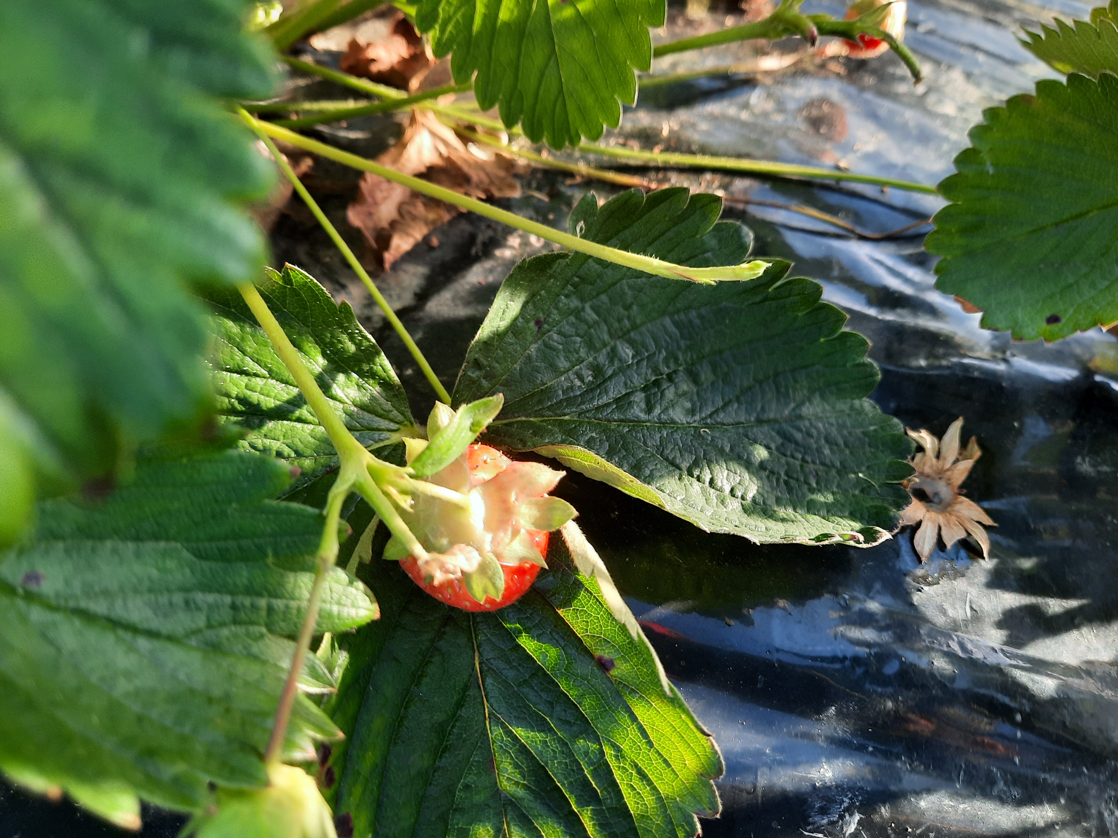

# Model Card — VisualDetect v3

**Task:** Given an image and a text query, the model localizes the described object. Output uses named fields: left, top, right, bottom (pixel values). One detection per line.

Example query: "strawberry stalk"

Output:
left=339, top=437, right=479, bottom=532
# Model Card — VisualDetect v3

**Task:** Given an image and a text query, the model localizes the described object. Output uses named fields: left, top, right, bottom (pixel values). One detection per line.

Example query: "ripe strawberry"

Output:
left=388, top=431, right=563, bottom=605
